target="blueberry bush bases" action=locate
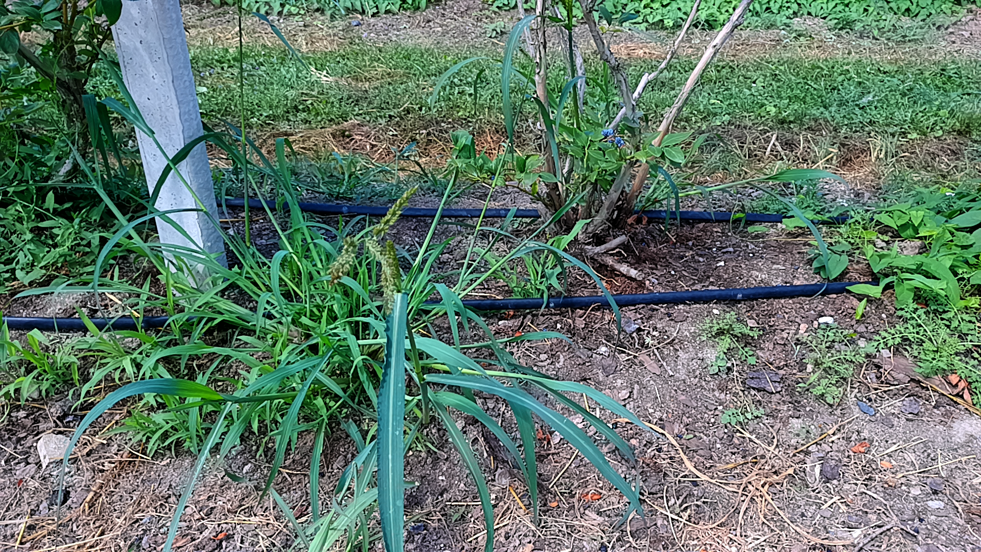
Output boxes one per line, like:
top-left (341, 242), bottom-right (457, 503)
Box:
top-left (2, 64), bottom-right (126, 245)
top-left (498, 107), bottom-right (693, 301)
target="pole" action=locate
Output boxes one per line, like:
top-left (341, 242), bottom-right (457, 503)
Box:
top-left (121, 0), bottom-right (238, 294)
